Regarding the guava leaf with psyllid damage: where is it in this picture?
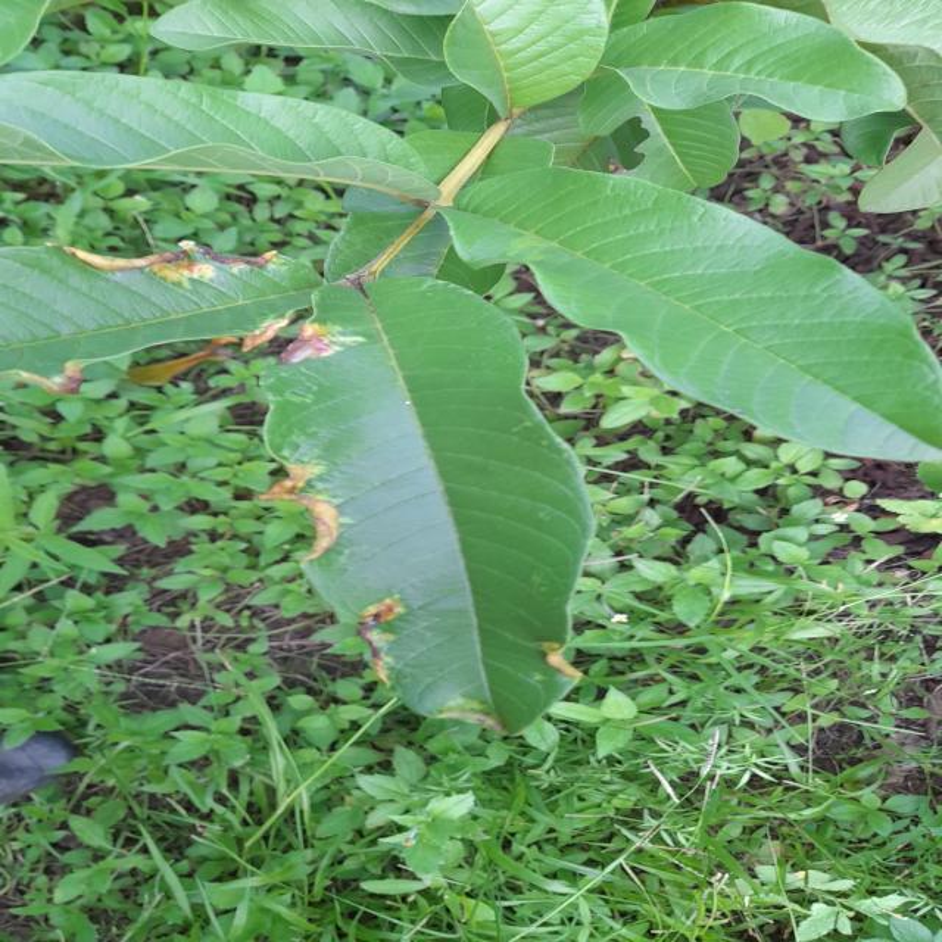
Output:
[219,262,664,743]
